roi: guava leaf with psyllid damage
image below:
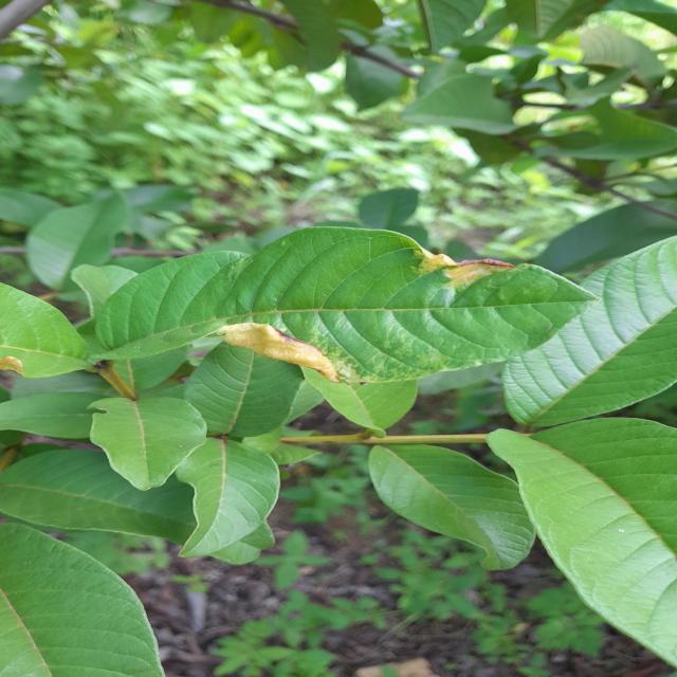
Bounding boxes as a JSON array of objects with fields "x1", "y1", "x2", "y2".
[{"x1": 58, "y1": 222, "x2": 606, "y2": 417}]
